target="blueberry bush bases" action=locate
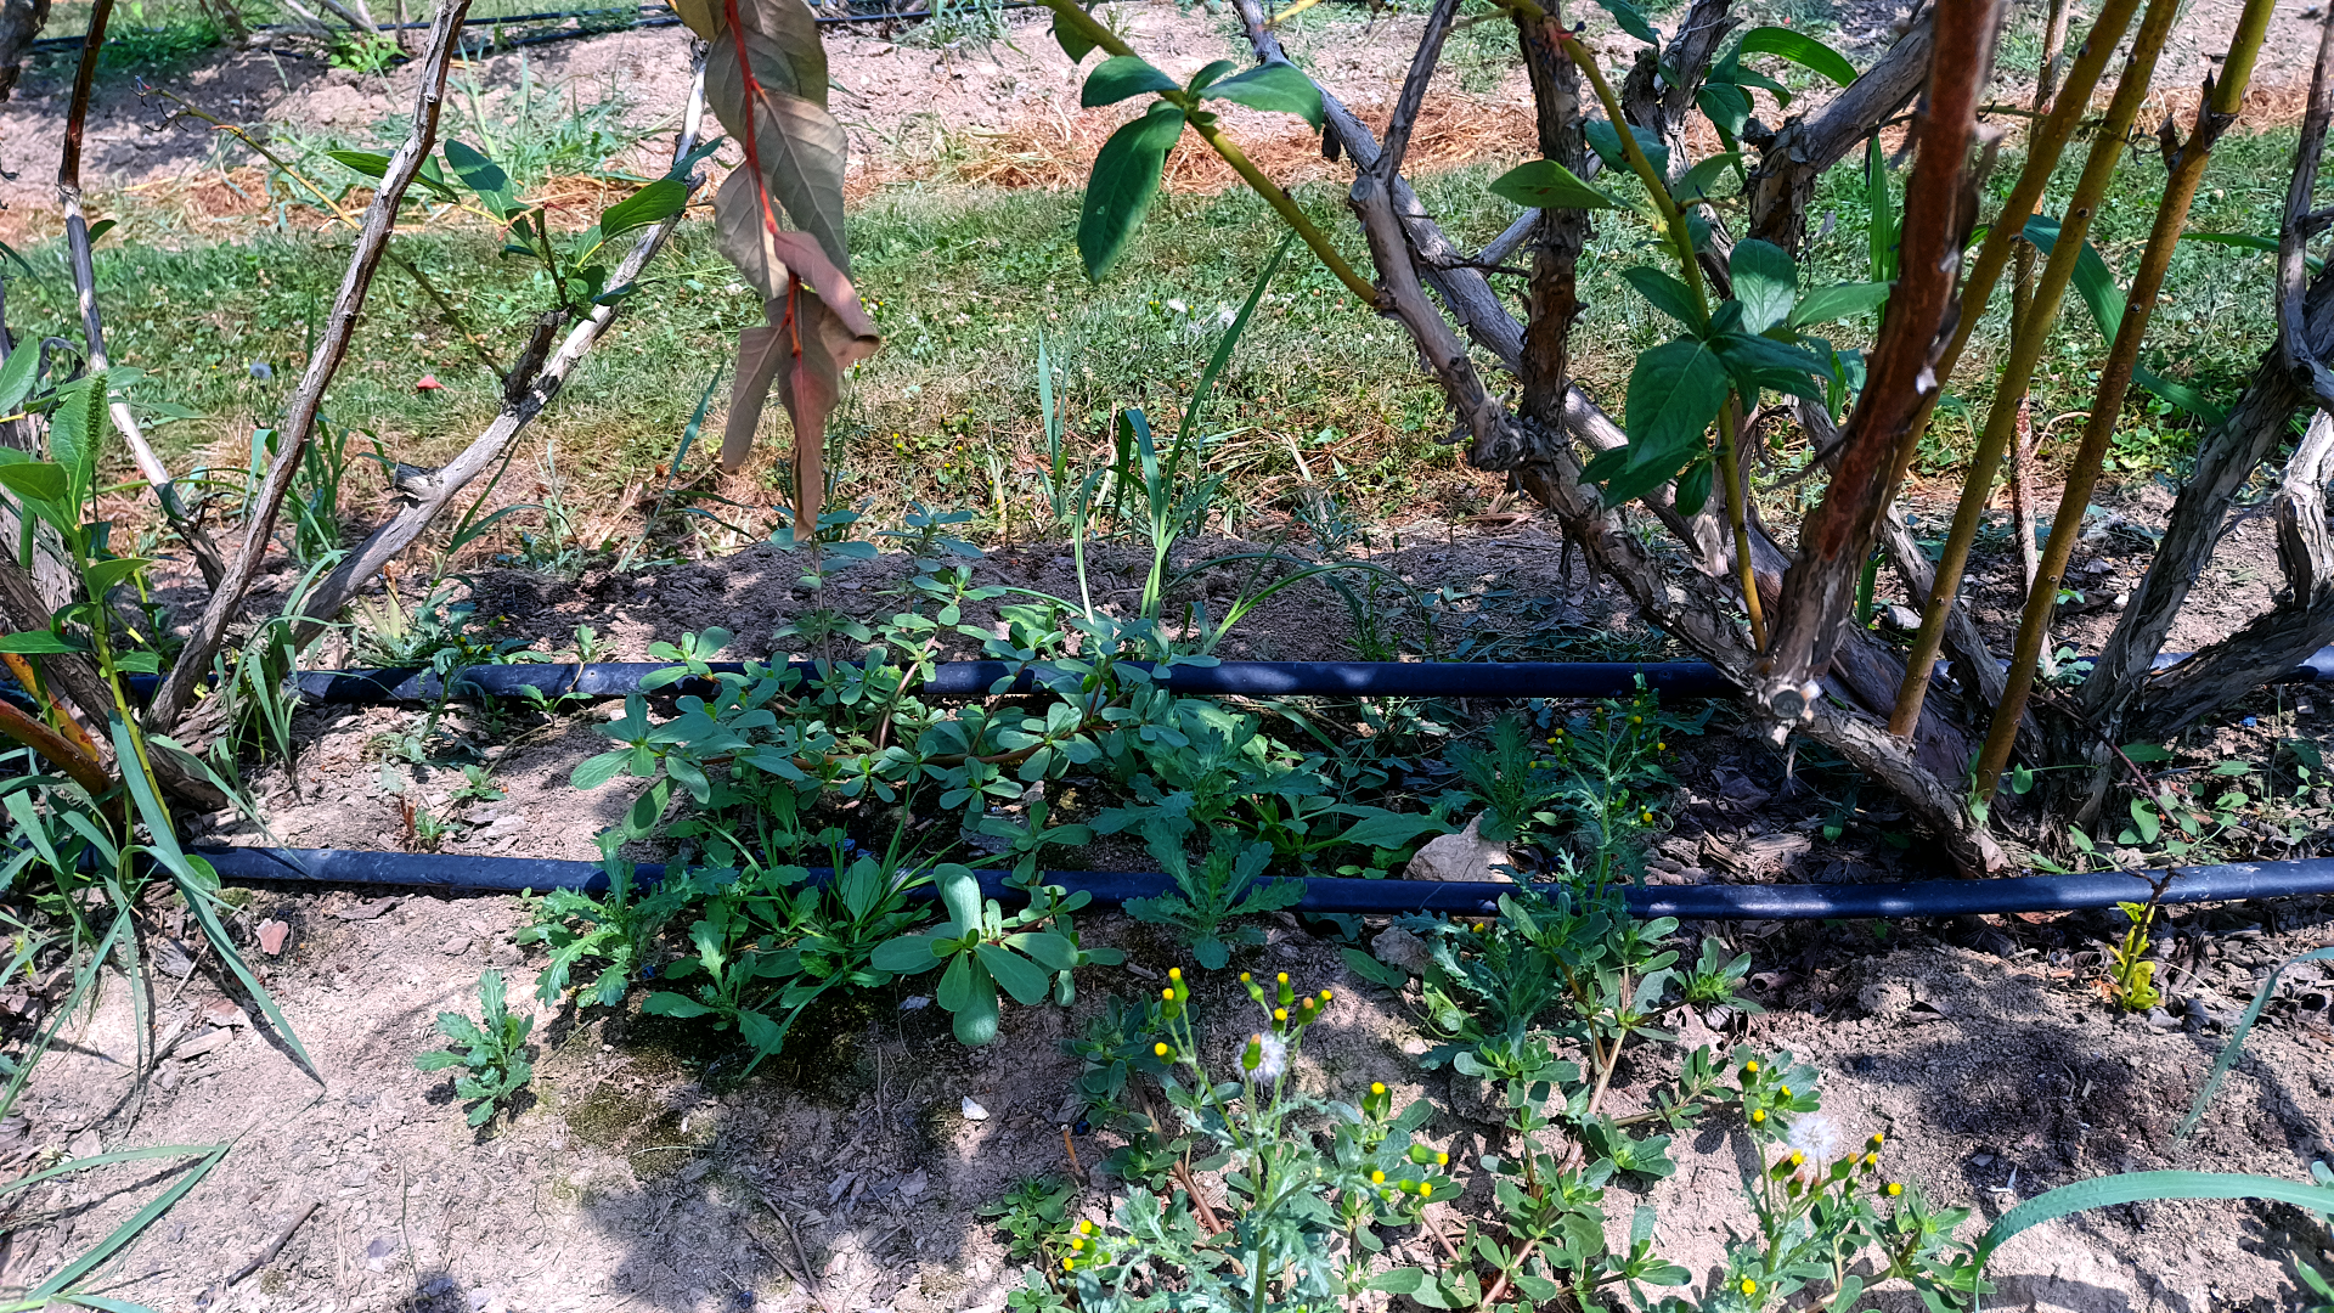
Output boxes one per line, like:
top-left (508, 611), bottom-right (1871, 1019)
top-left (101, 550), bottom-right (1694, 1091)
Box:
top-left (1482, 299), bottom-right (2334, 975)
top-left (0, 432), bottom-right (413, 987)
